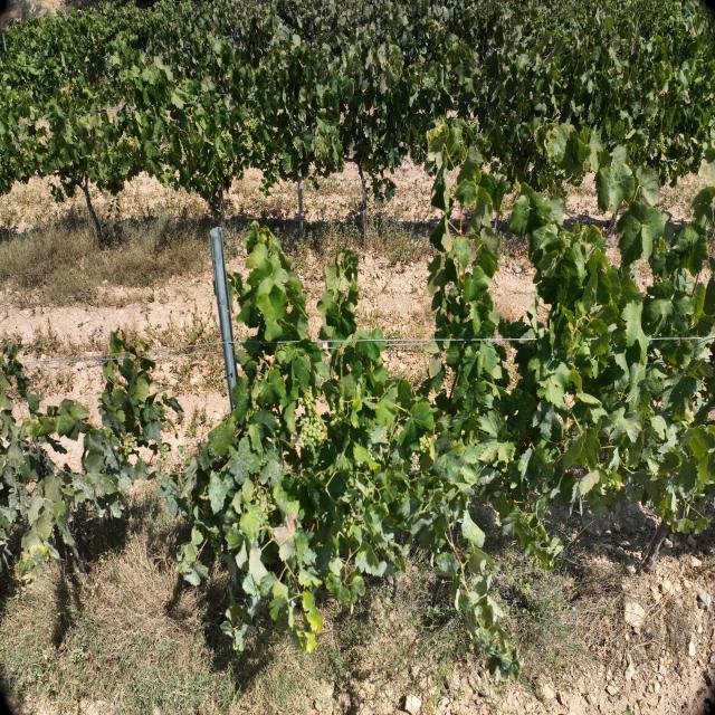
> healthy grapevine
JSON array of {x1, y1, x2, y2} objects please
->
[{"x1": 500, "y1": 170, "x2": 715, "y2": 609}]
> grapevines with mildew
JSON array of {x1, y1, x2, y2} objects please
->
[
  {"x1": 166, "y1": 246, "x2": 502, "y2": 666},
  {"x1": 0, "y1": 325, "x2": 173, "y2": 610}
]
